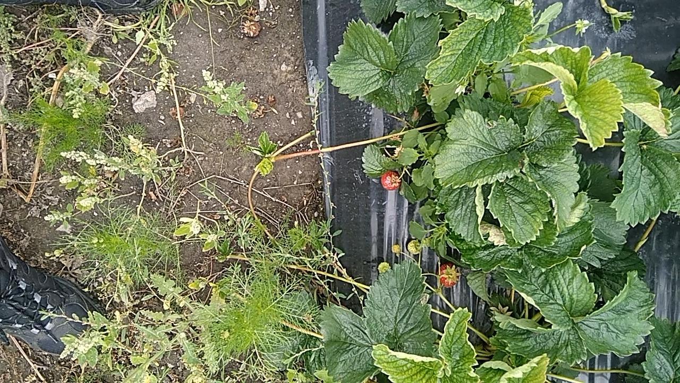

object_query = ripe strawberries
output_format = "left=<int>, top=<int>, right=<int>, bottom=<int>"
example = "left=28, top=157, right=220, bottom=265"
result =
left=380, top=170, right=401, bottom=191
left=438, top=264, right=461, bottom=289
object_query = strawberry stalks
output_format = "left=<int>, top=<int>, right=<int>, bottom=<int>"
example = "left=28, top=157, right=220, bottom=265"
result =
left=393, top=171, right=405, bottom=184
left=423, top=272, right=439, bottom=277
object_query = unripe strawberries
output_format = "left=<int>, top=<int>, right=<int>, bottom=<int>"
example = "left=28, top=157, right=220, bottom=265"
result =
left=407, top=236, right=422, bottom=255
left=376, top=261, right=391, bottom=274
left=389, top=243, right=401, bottom=254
